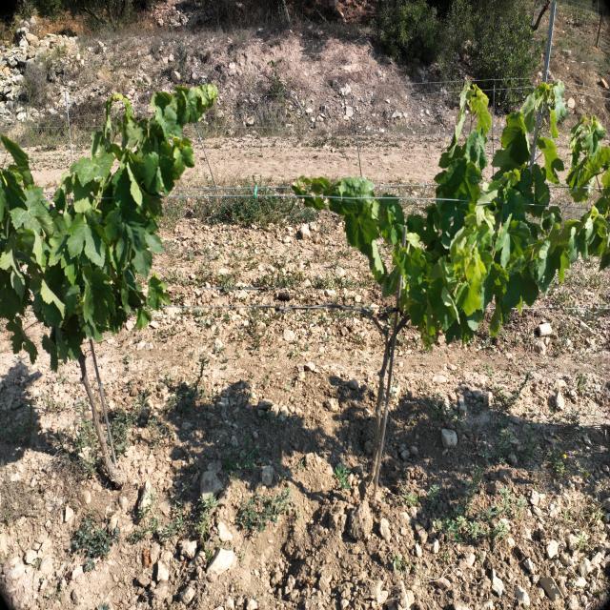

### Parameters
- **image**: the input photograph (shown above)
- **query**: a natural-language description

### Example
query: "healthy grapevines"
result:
[0,66,230,506]
[279,75,610,529]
